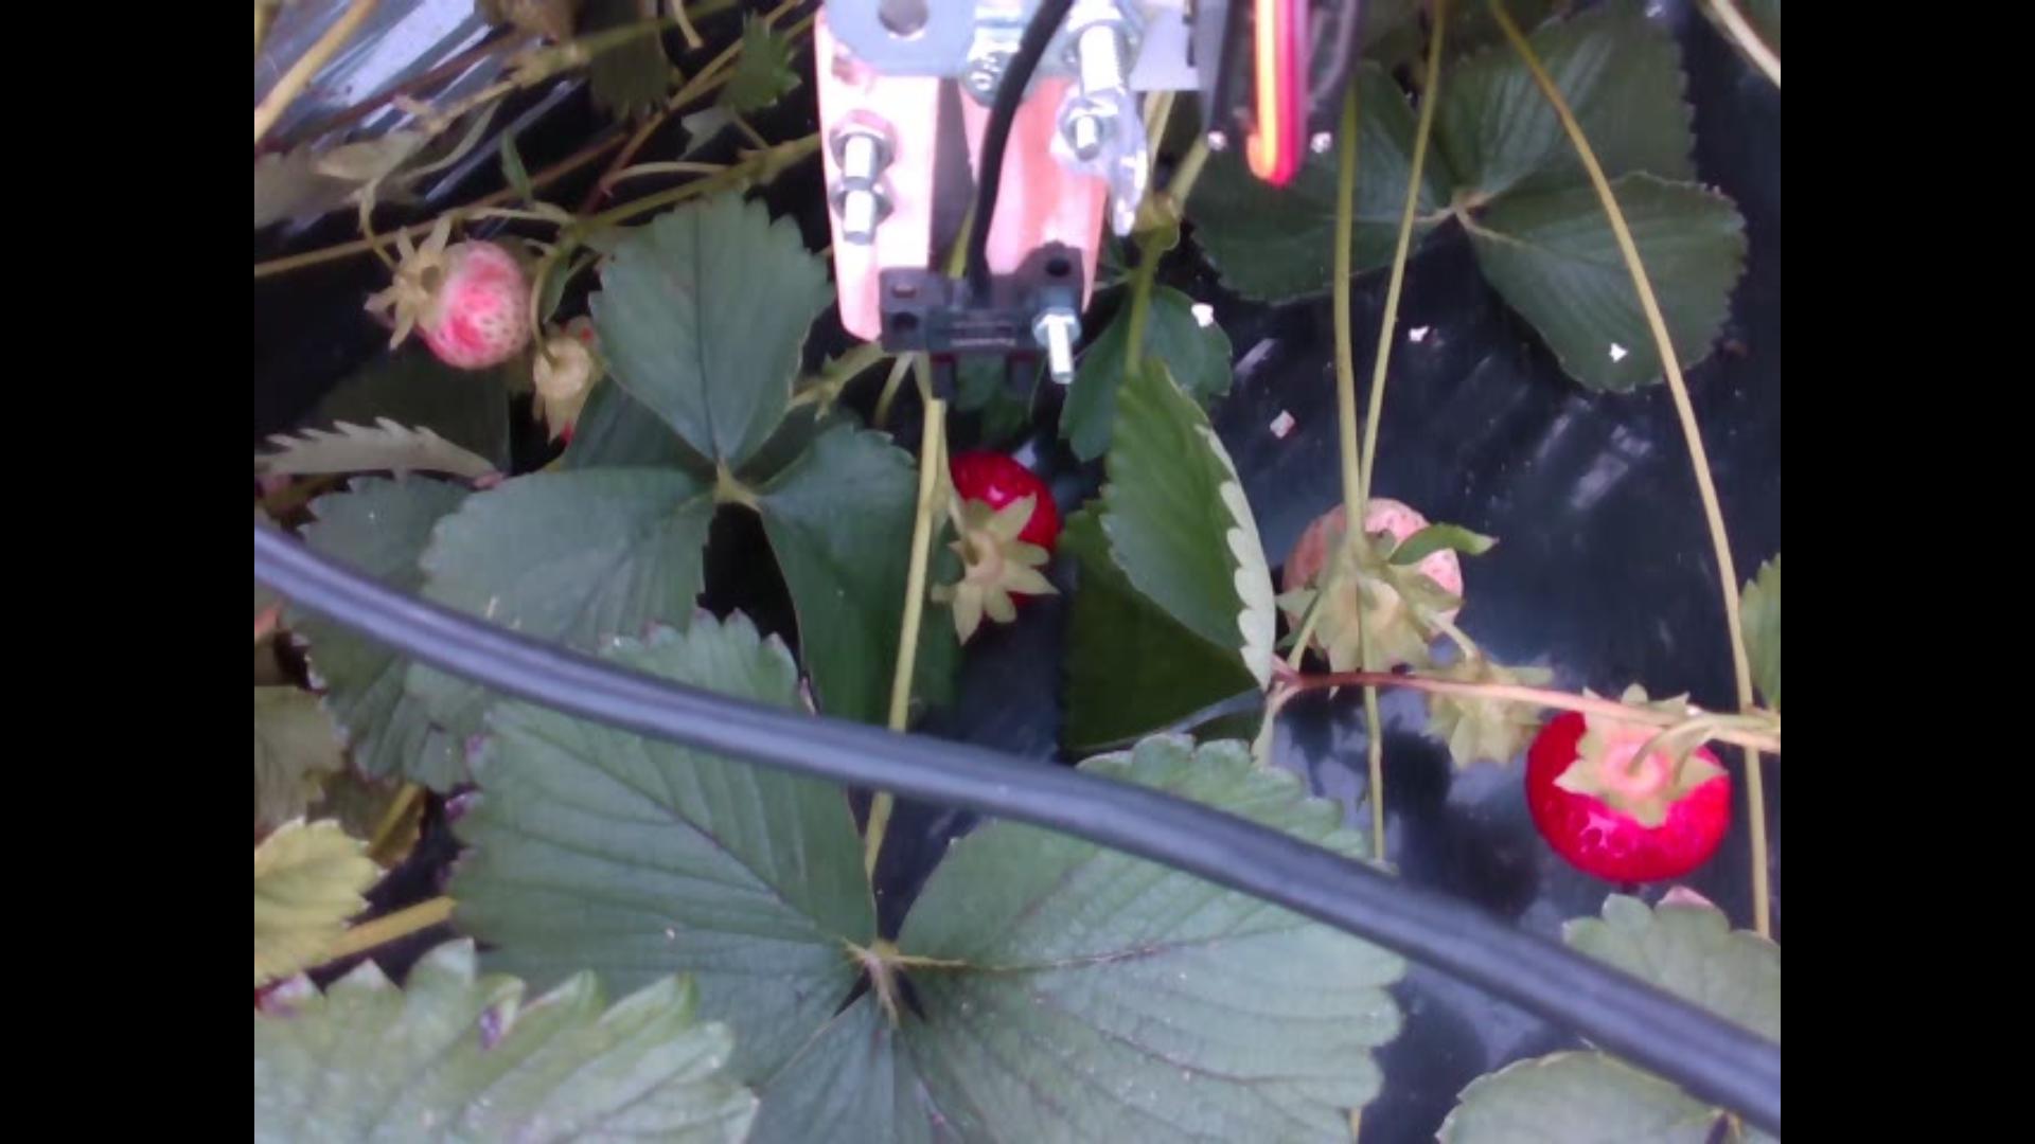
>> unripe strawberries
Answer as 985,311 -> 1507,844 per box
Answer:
402,235 -> 537,371
1281,488 -> 1463,681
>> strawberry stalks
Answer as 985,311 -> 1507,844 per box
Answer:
1357,558 -> 1469,636
922,455 -> 980,546
1615,702 -> 1794,782
356,226 -> 439,305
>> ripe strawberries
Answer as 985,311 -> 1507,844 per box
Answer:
511,305 -> 563,378
519,328 -> 641,441
1532,670 -> 1745,897
917,461 -> 1065,625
